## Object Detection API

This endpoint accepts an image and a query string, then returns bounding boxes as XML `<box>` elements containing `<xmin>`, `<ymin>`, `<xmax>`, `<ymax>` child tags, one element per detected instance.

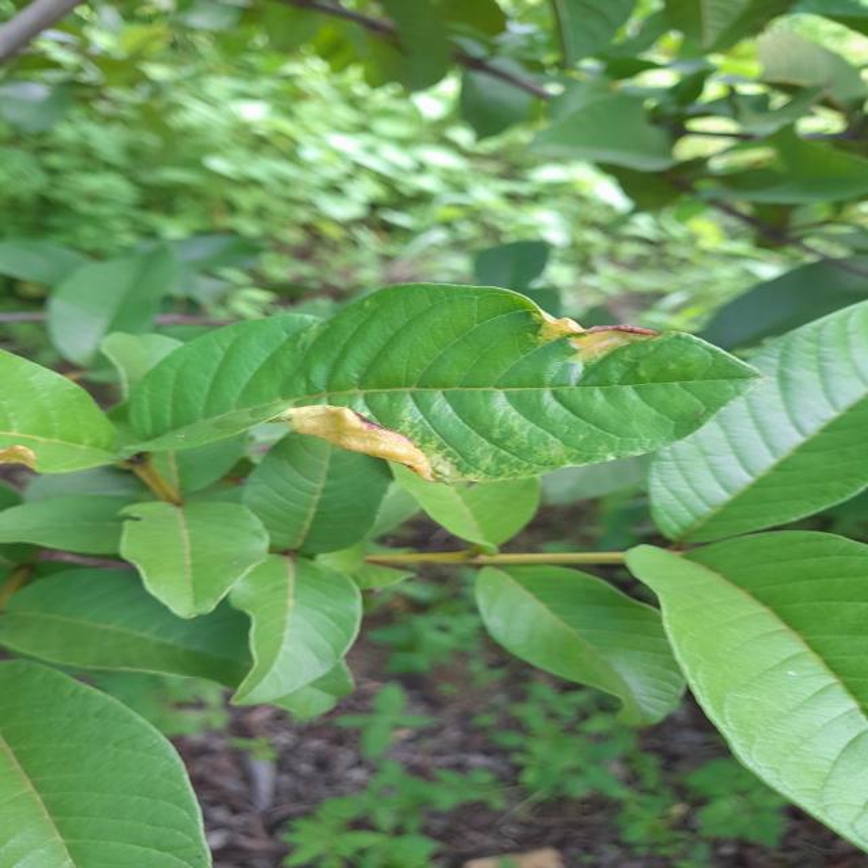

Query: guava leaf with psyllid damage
<box><xmin>99</xmin><ymin>273</ymin><xmax>773</xmax><ymax>513</ymax></box>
